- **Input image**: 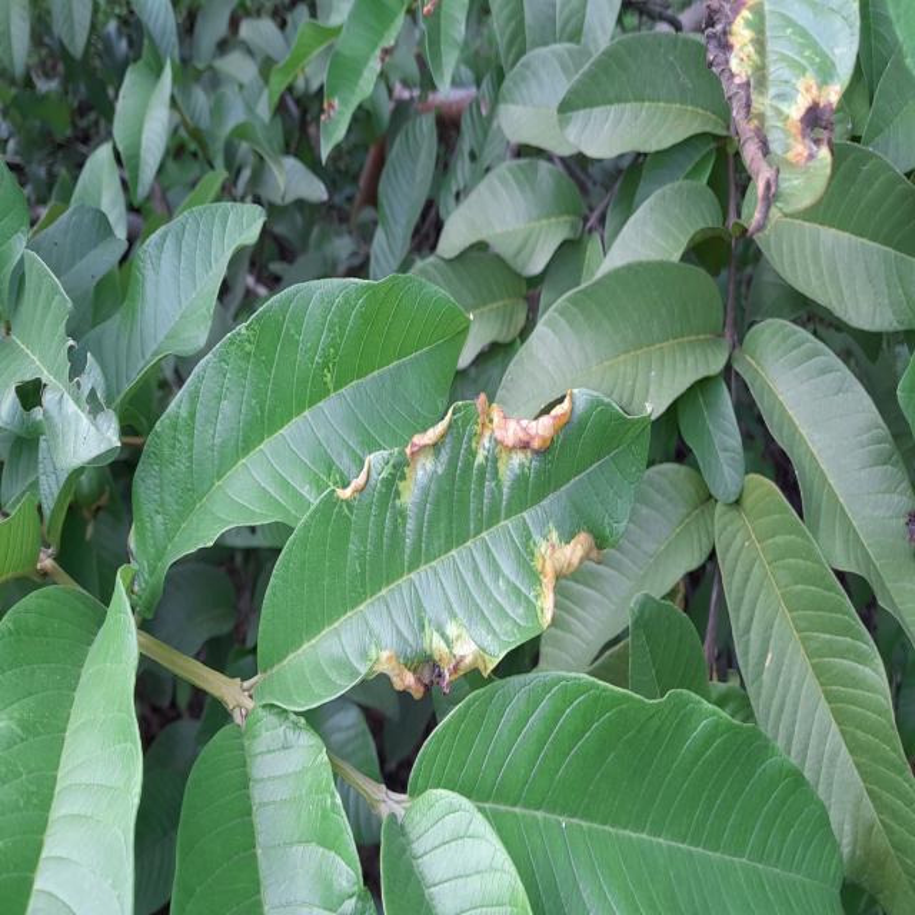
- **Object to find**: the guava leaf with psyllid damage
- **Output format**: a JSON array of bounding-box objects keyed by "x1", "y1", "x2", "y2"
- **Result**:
[{"x1": 250, "y1": 352, "x2": 676, "y2": 728}]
